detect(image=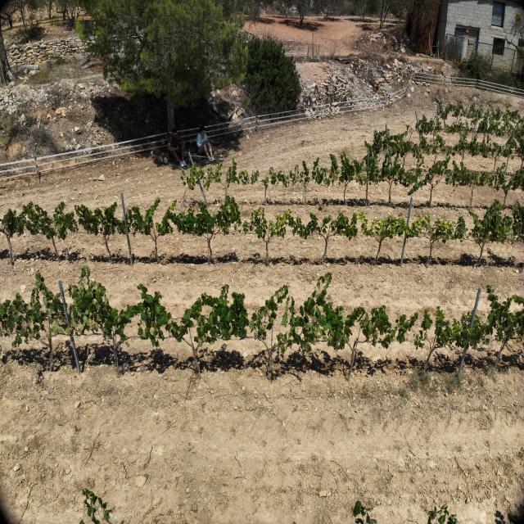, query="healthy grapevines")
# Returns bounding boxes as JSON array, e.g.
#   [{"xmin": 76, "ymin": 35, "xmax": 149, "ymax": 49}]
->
[
  {"xmin": 0, "ymin": 269, "xmax": 84, "ymax": 379},
  {"xmin": 137, "ymin": 281, "xmax": 235, "ymax": 384},
  {"xmin": 305, "ymin": 298, "xmax": 418, "ymax": 389},
  {"xmin": 403, "ymin": 305, "xmax": 486, "ymax": 380},
  {"xmin": 56, "ymin": 263, "xmax": 160, "ymax": 382},
  {"xmin": 483, "ymin": 295, "xmax": 524, "ymax": 377},
  {"xmin": 228, "ymin": 268, "xmax": 333, "ymax": 385}
]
